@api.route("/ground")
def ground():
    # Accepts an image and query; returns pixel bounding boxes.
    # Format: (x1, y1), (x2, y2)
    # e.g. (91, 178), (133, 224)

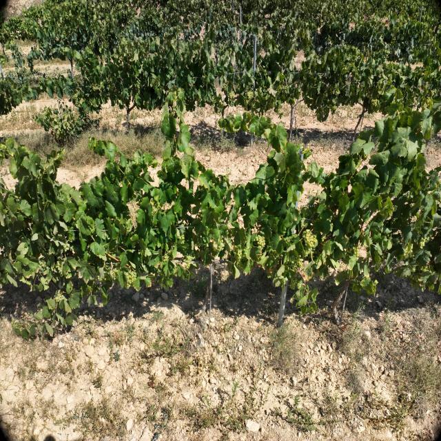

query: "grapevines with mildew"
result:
(0, 140), (142, 349)
(260, 114), (441, 340)
(141, 101), (268, 346)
